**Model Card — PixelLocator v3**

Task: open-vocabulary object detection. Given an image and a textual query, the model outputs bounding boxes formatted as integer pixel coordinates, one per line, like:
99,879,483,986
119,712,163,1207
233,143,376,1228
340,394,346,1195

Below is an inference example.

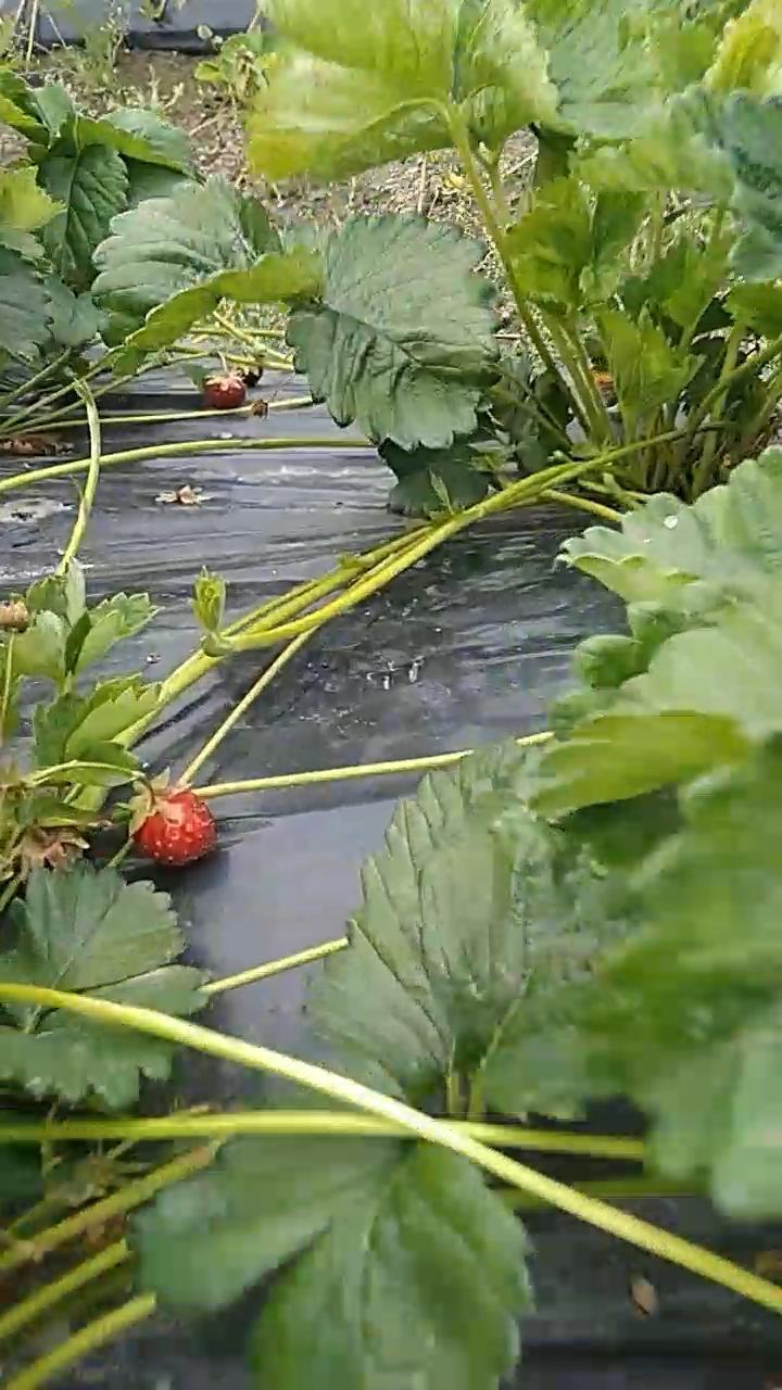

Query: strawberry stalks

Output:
215,337,239,387
44,761,169,812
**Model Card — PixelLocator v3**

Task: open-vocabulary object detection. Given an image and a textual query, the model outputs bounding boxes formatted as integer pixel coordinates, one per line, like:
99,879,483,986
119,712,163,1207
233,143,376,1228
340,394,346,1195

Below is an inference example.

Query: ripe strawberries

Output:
134,790,233,873
204,370,247,409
